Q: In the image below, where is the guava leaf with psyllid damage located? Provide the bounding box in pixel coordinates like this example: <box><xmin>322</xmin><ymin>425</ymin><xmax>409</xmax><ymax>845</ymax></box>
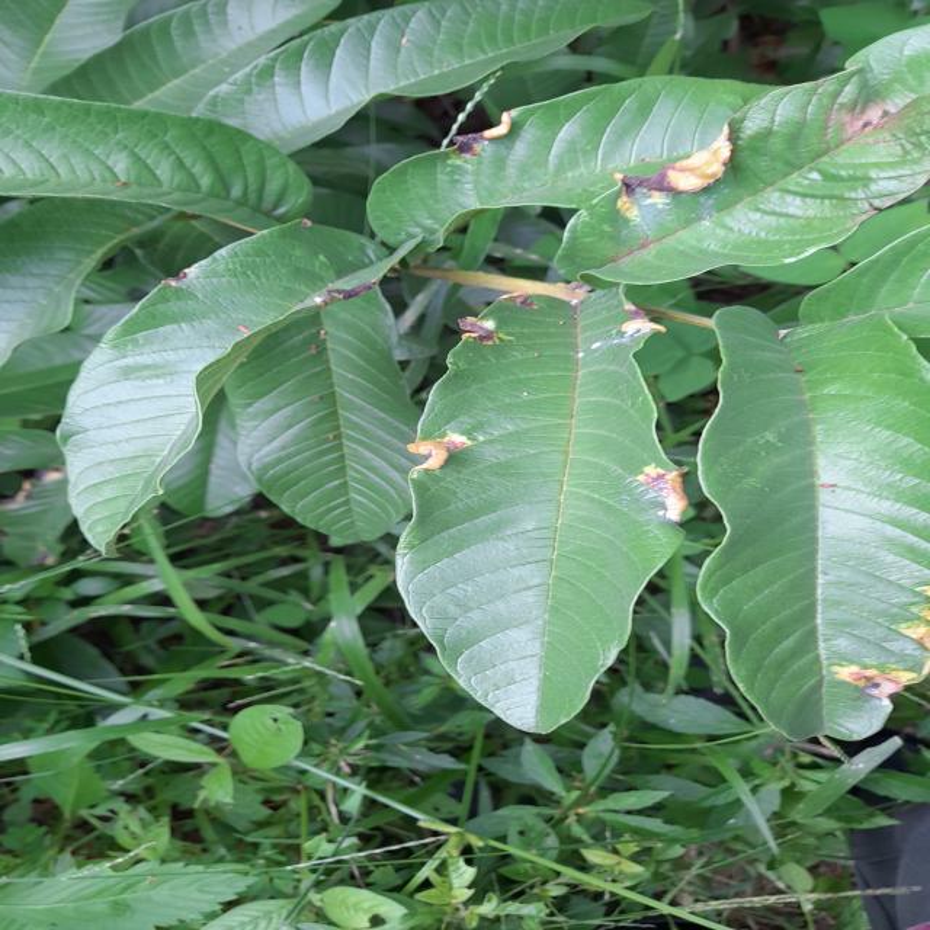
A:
<box><xmin>387</xmin><ymin>262</ymin><xmax>691</xmax><ymax>775</ymax></box>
